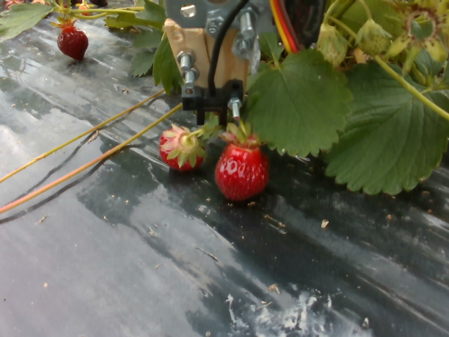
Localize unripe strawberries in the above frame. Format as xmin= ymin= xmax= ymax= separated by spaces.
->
xmin=356 ymin=23 xmax=388 ymax=58
xmin=316 ymin=24 xmax=348 ymax=67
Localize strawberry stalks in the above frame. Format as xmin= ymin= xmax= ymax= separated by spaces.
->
xmin=322 ymin=0 xmax=340 ymax=40
xmin=232 ymin=114 xmax=253 ymax=155
xmin=62 ymin=6 xmax=72 ymax=35
xmin=182 ymin=117 xmax=215 ymax=150
xmin=357 ymin=0 xmax=377 ymax=27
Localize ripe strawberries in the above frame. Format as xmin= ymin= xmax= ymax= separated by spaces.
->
xmin=56 ymin=28 xmax=89 ymax=58
xmin=159 ymin=131 xmax=203 ymax=169
xmin=217 ymin=143 xmax=268 ymax=200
